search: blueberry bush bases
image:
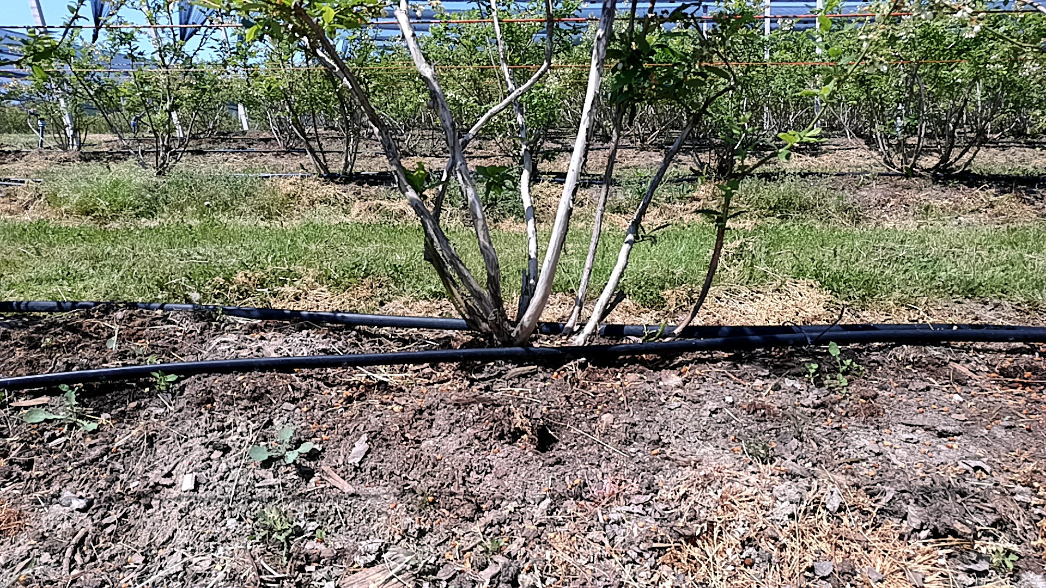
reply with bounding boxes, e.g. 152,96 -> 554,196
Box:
697,145 -> 761,189
182,120 -> 230,147
402,221 -> 692,373
263,125 -> 307,158
303,145 -> 375,192
883,144 -> 963,191
134,147 -> 187,187
44,126 -> 99,162
622,119 -> 662,157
